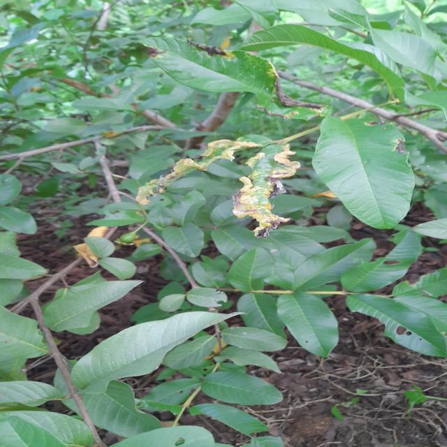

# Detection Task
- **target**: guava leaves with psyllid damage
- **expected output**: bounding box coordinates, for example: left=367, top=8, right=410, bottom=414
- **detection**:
left=237, top=141, right=314, bottom=241
left=133, top=119, right=271, bottom=213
